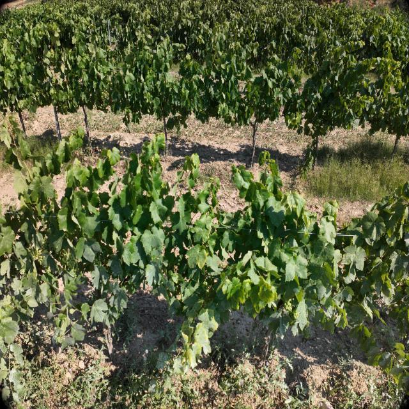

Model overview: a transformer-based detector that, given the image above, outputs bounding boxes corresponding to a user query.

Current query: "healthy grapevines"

[352,175,409,384]
[177,166,357,389]
[0,144,179,378]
